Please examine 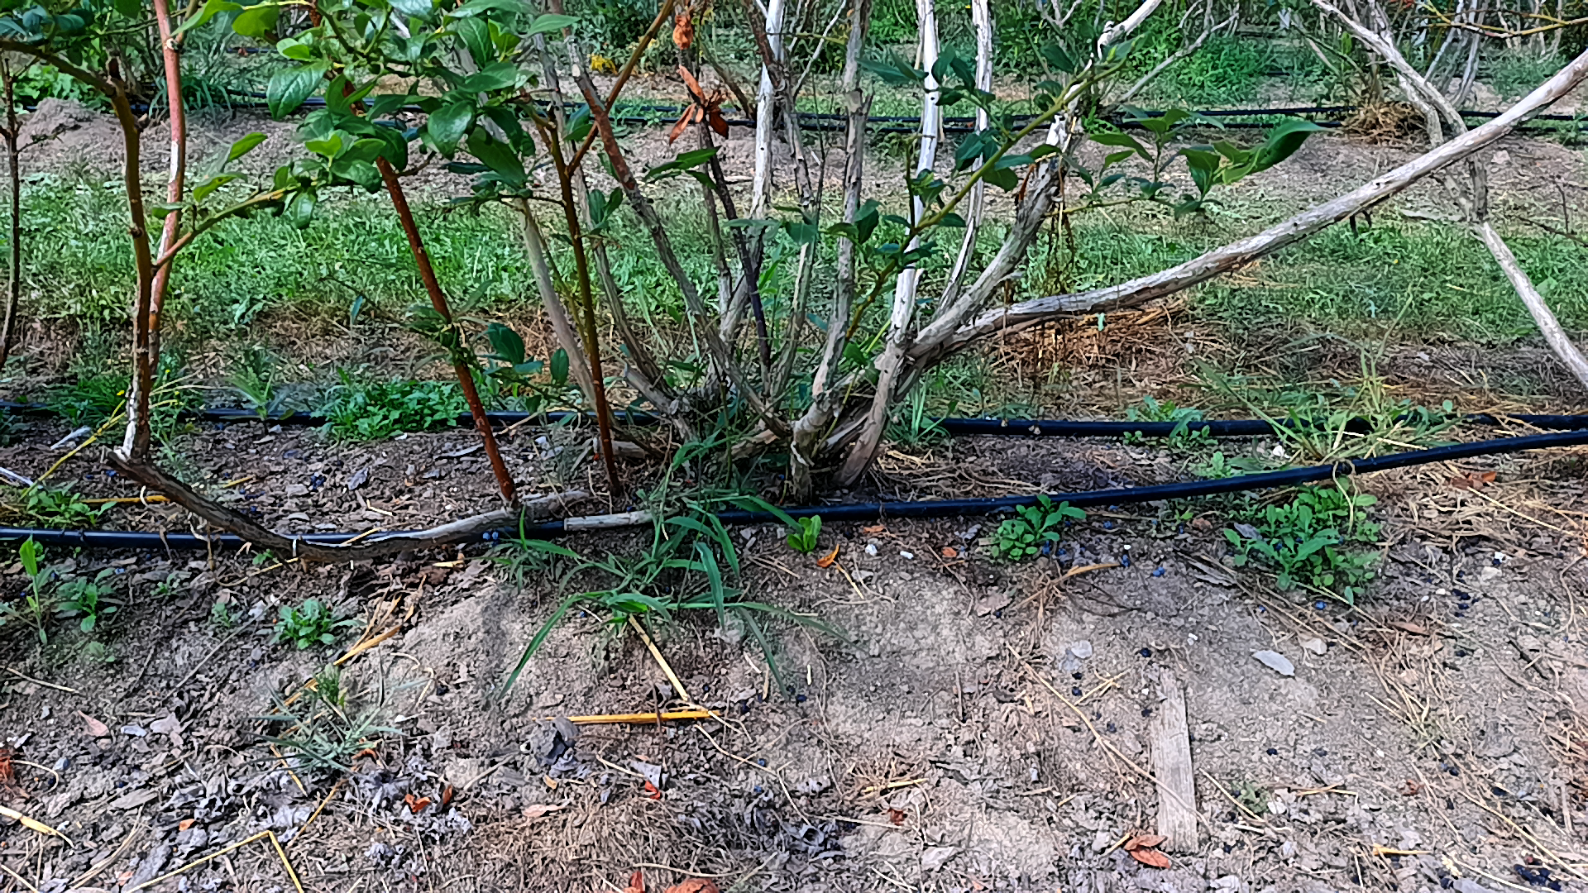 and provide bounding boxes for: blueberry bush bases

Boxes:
[1498,262,1588,499]
[477,264,1018,572]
